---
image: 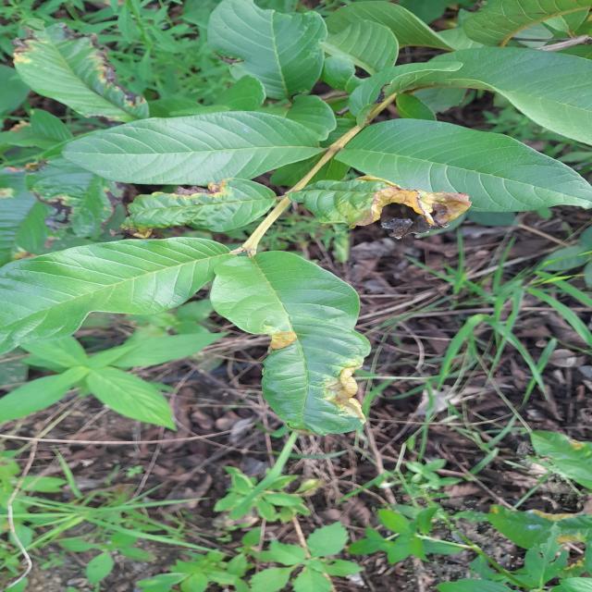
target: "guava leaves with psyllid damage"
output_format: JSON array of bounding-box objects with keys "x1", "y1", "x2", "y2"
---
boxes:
[
  {"x1": 285, "y1": 167, "x2": 497, "y2": 236},
  {"x1": 198, "y1": 248, "x2": 398, "y2": 443}
]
